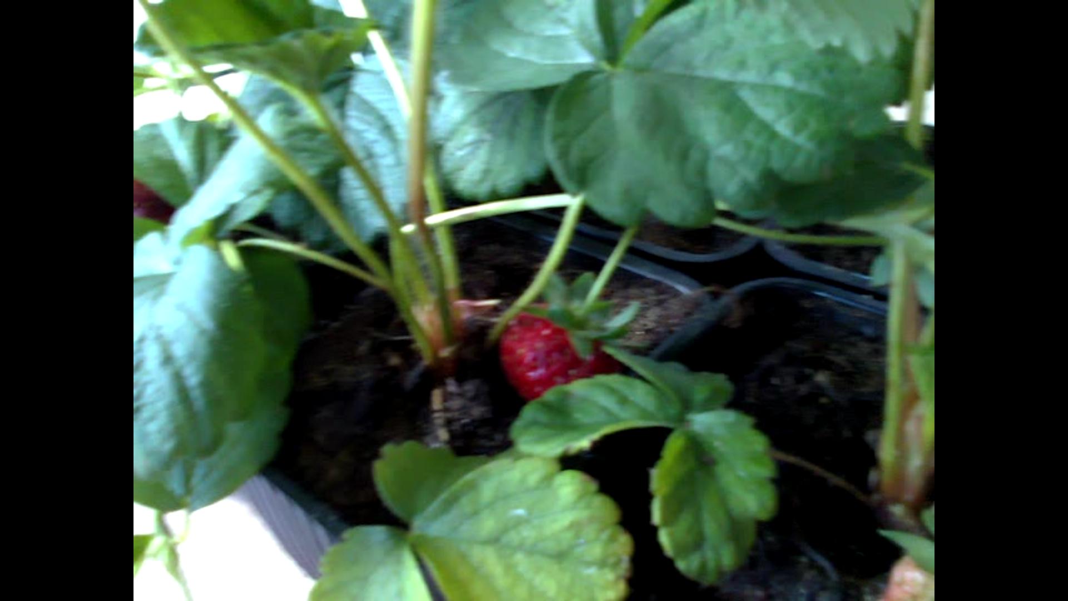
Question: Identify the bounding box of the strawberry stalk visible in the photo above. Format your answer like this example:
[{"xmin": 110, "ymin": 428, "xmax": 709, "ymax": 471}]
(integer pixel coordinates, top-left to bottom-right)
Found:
[{"xmin": 546, "ymin": 226, "xmax": 654, "ymax": 342}]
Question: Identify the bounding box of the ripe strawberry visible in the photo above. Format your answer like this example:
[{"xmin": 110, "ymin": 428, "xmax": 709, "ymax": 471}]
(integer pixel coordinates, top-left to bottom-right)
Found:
[{"xmin": 500, "ymin": 300, "xmax": 632, "ymax": 400}]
